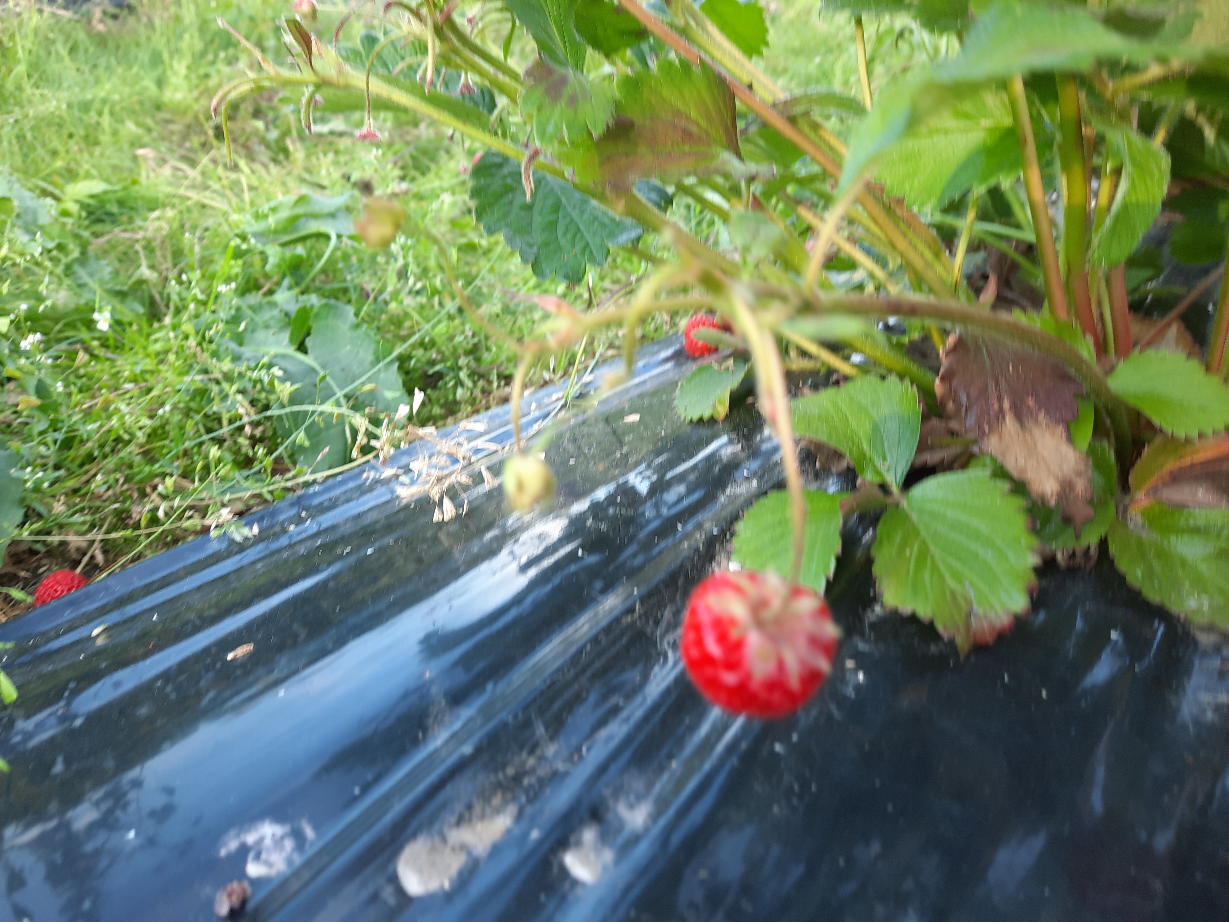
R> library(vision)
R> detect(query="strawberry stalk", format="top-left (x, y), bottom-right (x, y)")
top-left (755, 426), bottom-right (813, 651)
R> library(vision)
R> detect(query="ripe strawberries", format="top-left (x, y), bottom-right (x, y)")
top-left (682, 310), bottom-right (727, 358)
top-left (669, 582), bottom-right (836, 707)
top-left (35, 571), bottom-right (86, 619)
